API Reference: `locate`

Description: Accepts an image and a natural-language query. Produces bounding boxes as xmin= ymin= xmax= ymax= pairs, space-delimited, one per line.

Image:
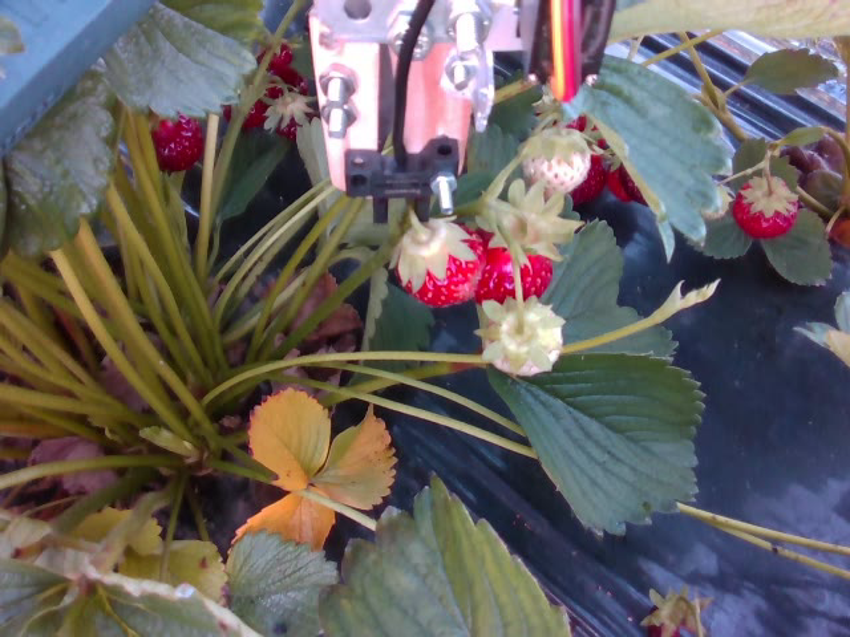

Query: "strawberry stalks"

xmin=393 ymin=184 xmax=428 ymax=249
xmin=757 ymin=147 xmax=781 ymax=208
xmin=513 ymin=243 xmax=528 ymax=341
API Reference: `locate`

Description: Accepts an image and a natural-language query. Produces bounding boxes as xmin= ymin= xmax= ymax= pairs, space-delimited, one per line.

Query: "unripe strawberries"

xmin=486 ymin=299 xmax=557 ymax=372
xmin=521 ymin=130 xmax=590 ymax=195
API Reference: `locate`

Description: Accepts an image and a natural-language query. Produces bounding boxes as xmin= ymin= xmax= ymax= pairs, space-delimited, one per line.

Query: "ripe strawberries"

xmin=482 ymin=237 xmax=547 ymax=296
xmin=154 ymin=113 xmax=205 ymax=174
xmin=739 ymin=179 xmax=797 ymax=234
xmin=275 ymin=92 xmax=314 ymax=140
xmin=391 ymin=230 xmax=481 ymax=305
xmin=229 ymin=86 xmax=271 ymax=128
xmin=609 ymin=150 xmax=657 ymax=204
